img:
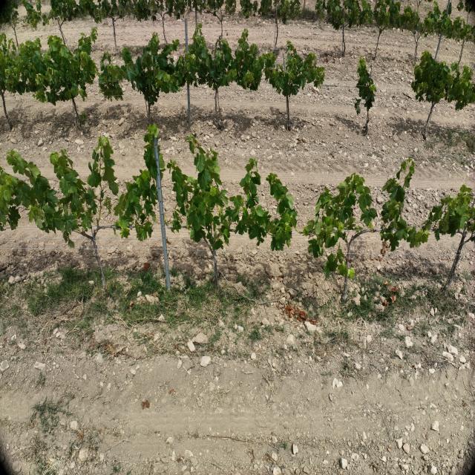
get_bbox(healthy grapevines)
[423,174,475,298]
[1,126,166,304]
[300,165,423,313]
[165,130,300,300]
